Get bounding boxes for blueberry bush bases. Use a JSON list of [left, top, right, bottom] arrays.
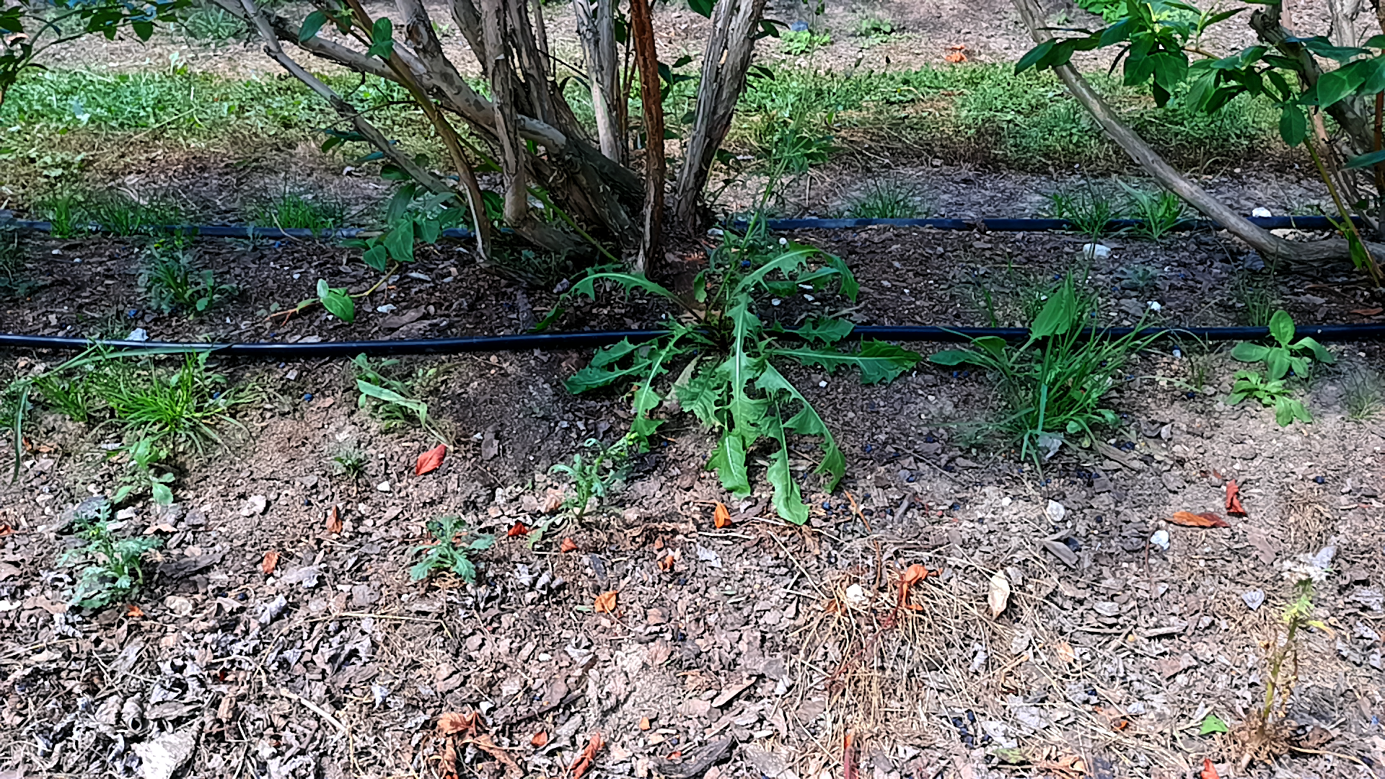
[[402, 82, 765, 371], [1259, 92, 1385, 348]]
